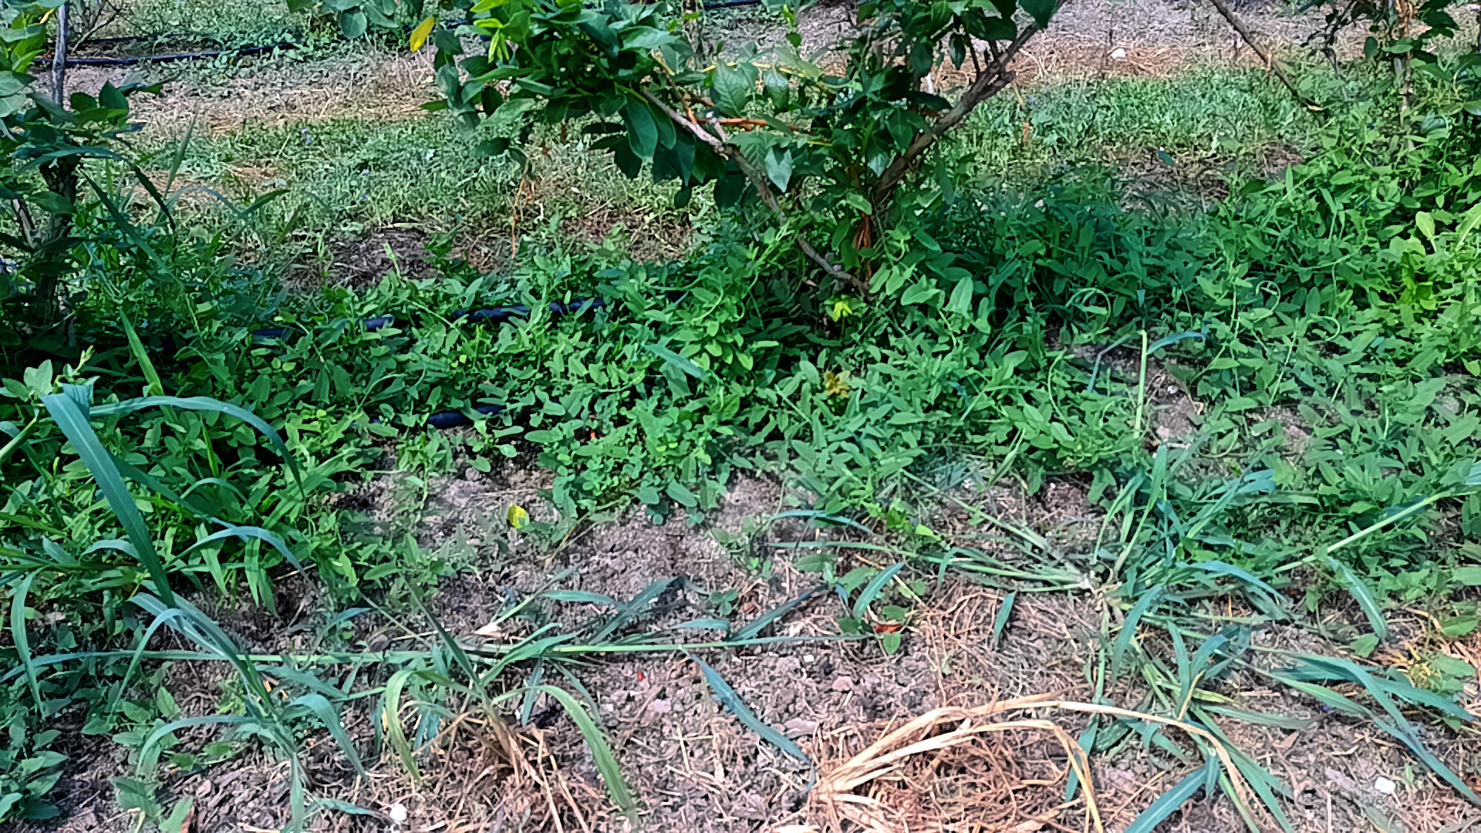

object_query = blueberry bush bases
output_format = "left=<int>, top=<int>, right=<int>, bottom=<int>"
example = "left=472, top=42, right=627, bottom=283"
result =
left=1234, top=31, right=1473, bottom=345
left=656, top=93, right=990, bottom=420
left=2, top=87, right=103, bottom=437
